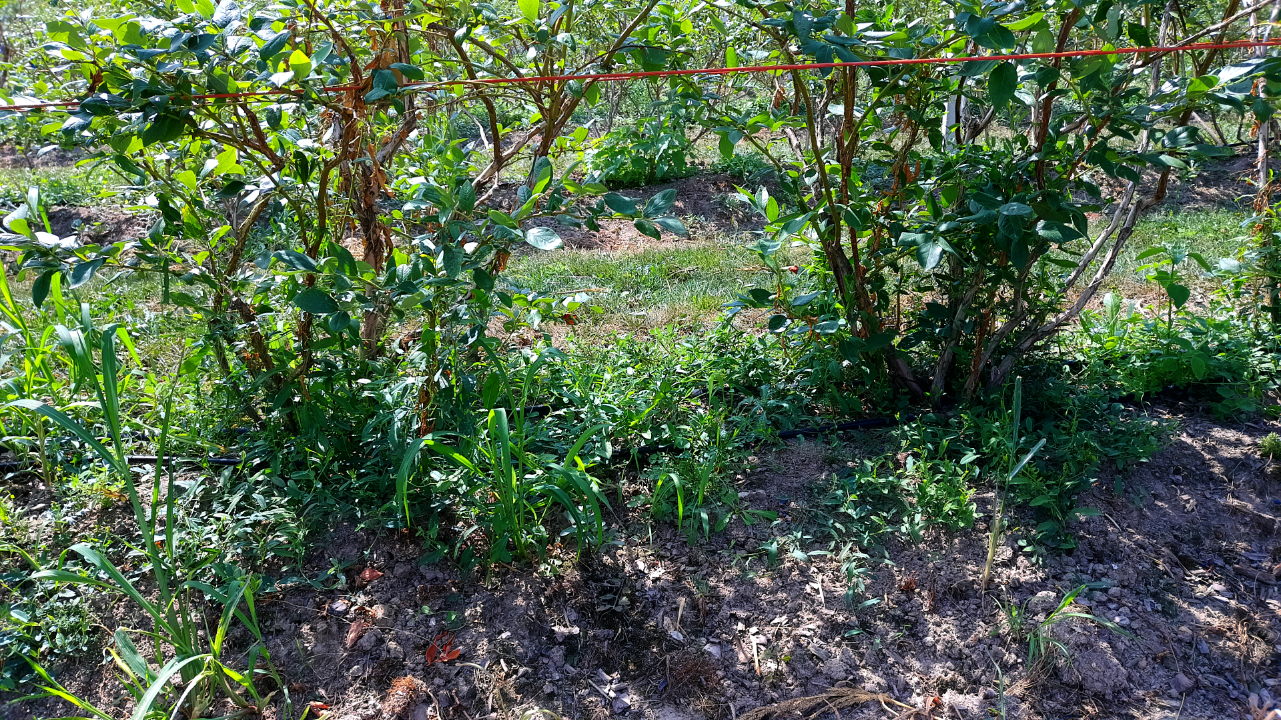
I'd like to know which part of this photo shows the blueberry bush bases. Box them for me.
[203,296,513,526]
[610,121,723,197]
[796,241,1108,465]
